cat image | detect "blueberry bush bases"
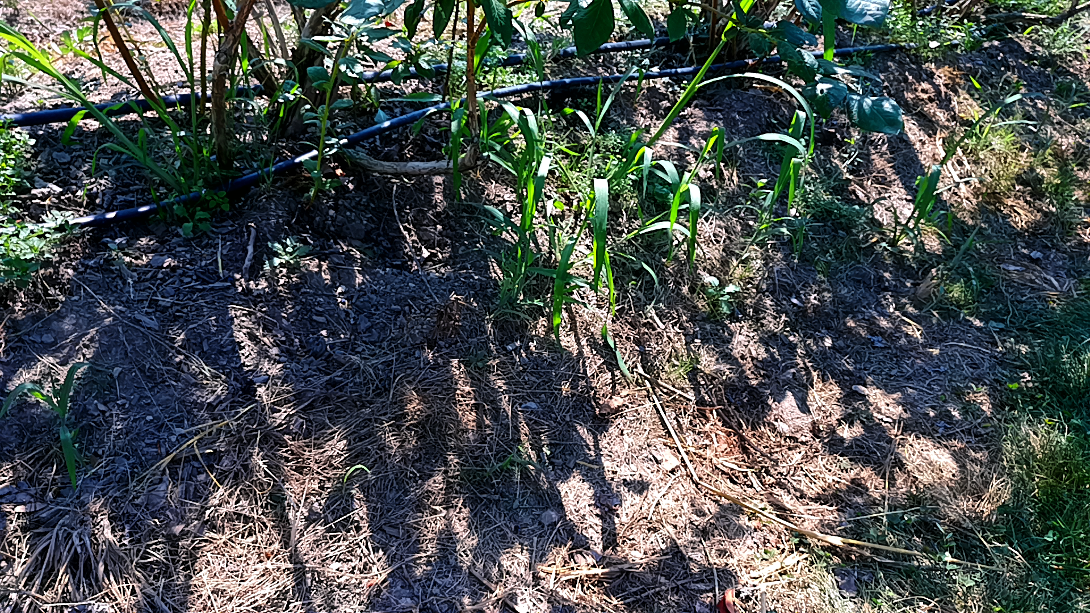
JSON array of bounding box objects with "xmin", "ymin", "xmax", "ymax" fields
[
  {"xmin": 683, "ymin": 1, "xmax": 787, "ymax": 71},
  {"xmin": 185, "ymin": 24, "xmax": 372, "ymax": 178},
  {"xmin": 968, "ymin": 0, "xmax": 1089, "ymax": 45}
]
